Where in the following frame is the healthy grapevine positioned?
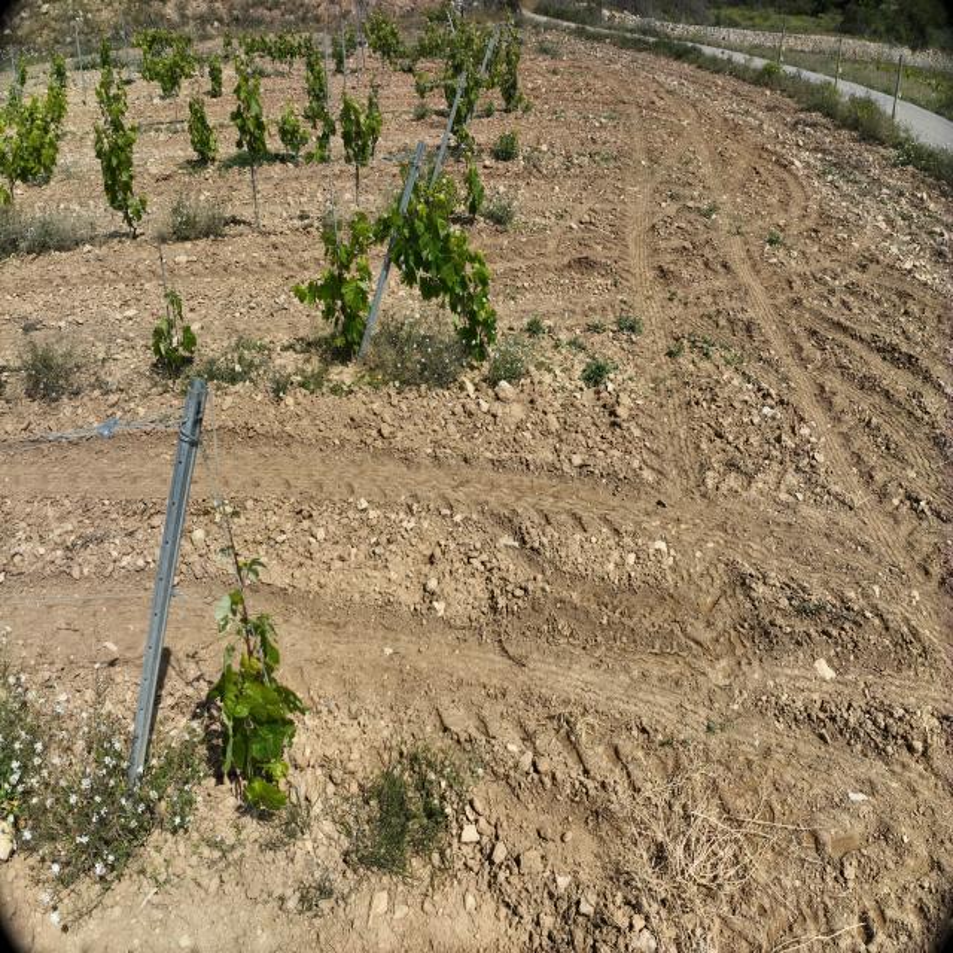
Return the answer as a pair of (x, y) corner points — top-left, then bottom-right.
(191, 532), (312, 838)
